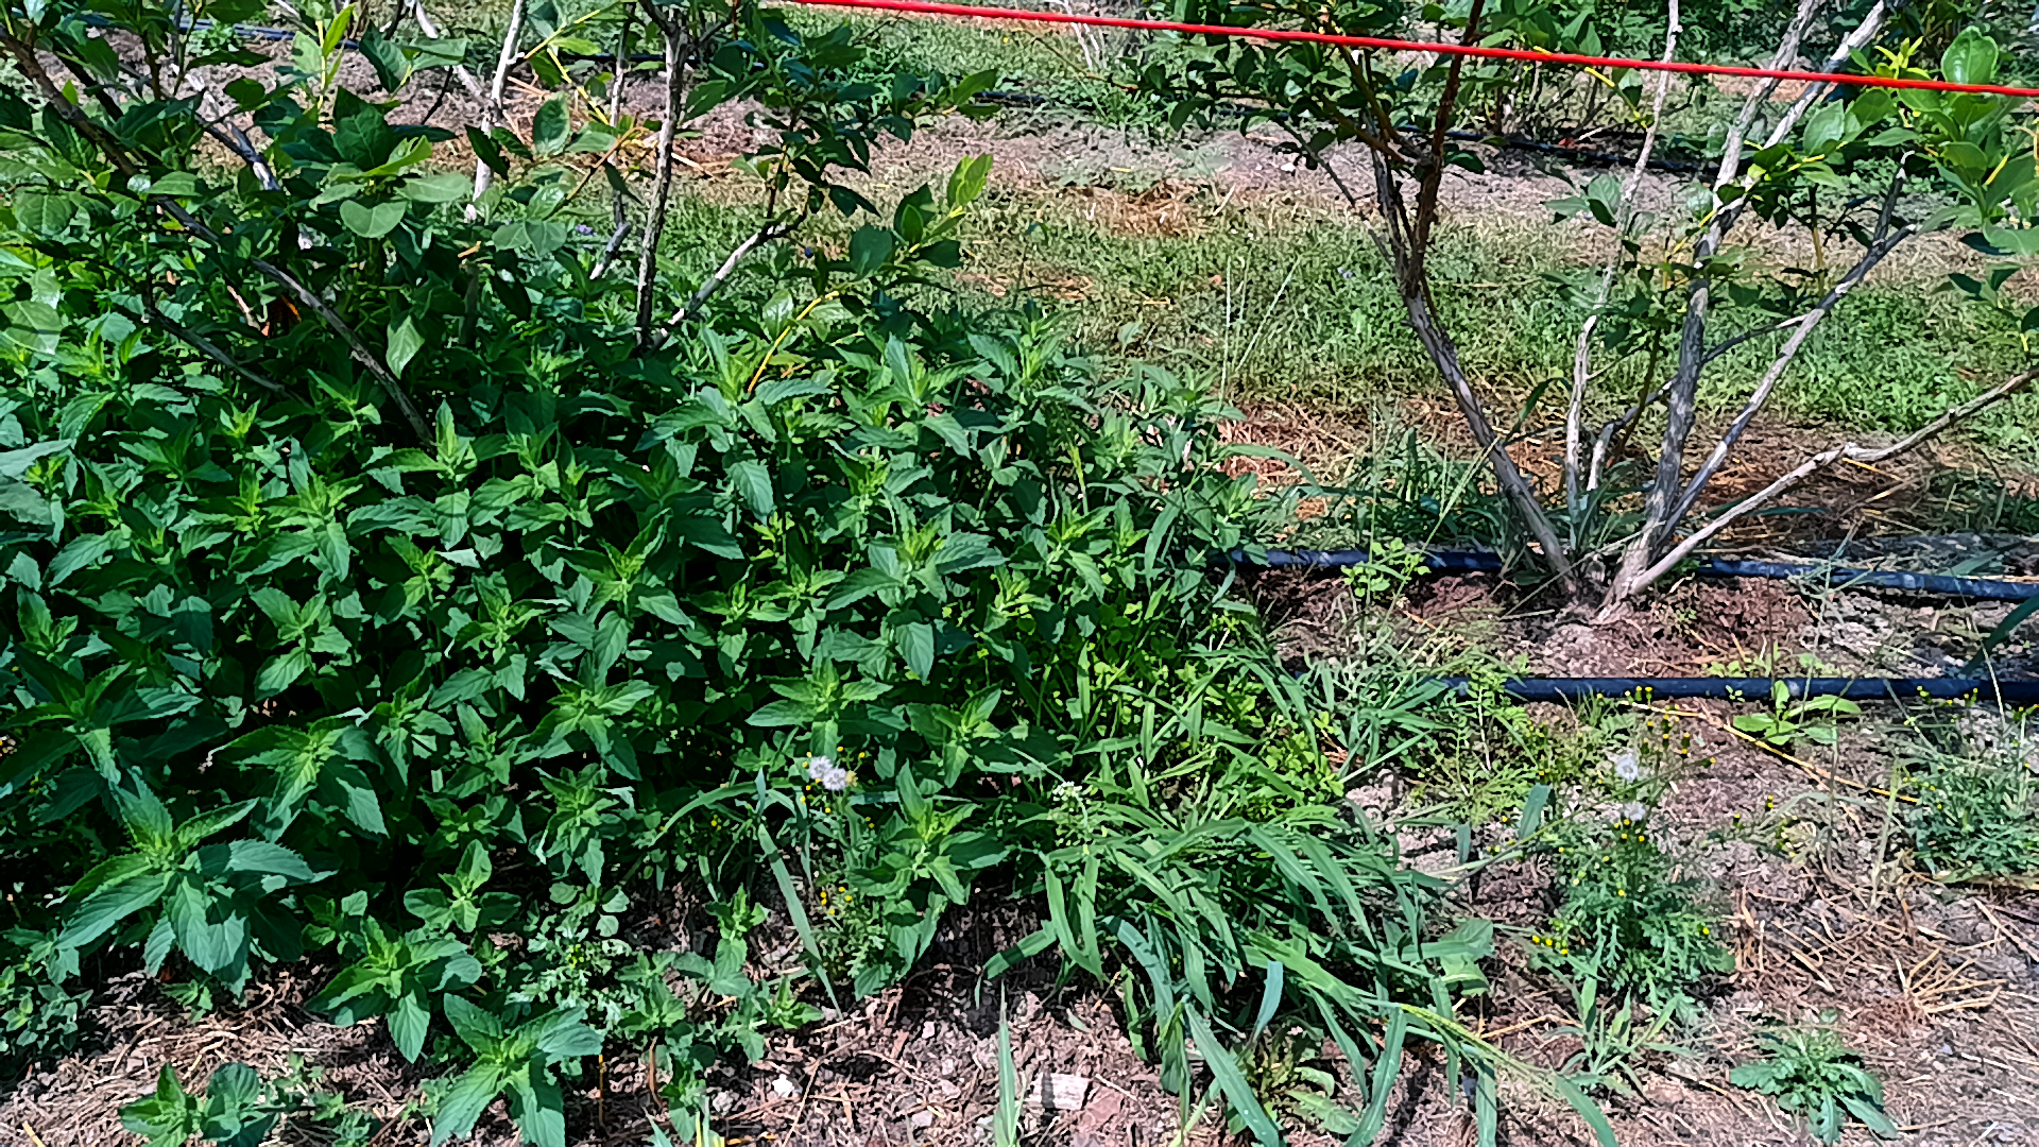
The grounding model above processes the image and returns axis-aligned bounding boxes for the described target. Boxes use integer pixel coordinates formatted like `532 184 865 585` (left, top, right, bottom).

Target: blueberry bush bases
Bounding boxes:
1062 19 1166 87
125 159 750 459
1461 83 1603 175
1409 346 1805 677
